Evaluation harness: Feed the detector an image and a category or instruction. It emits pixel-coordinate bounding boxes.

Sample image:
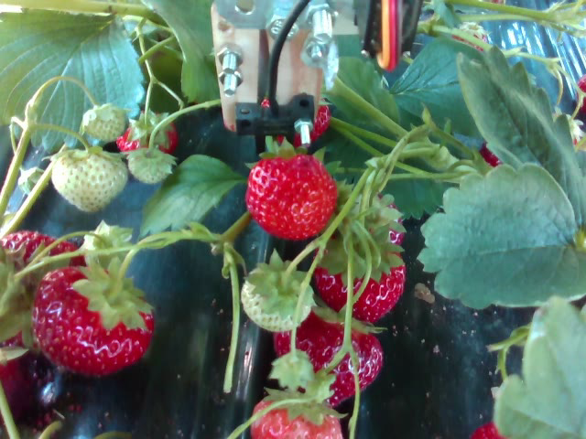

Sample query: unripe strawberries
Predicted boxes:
[82,106,125,140]
[248,273,310,324]
[59,150,126,215]
[129,146,177,182]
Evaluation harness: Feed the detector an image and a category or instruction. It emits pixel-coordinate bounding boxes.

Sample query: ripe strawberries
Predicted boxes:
[251,393,347,439]
[33,269,150,371]
[283,312,385,399]
[327,242,401,313]
[0,234,93,296]
[116,116,176,155]
[250,156,334,235]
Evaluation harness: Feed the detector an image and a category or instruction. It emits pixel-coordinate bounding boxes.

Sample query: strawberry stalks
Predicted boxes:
[93,225,179,309]
[270,241,318,297]
[300,349,350,418]
[61,129,90,161]
[137,86,154,146]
